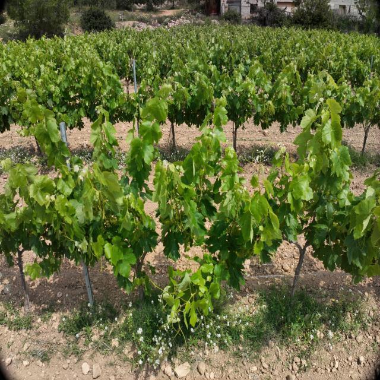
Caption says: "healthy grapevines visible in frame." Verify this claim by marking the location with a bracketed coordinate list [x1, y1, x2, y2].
[0, 99, 197, 332]
[199, 110, 380, 320]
